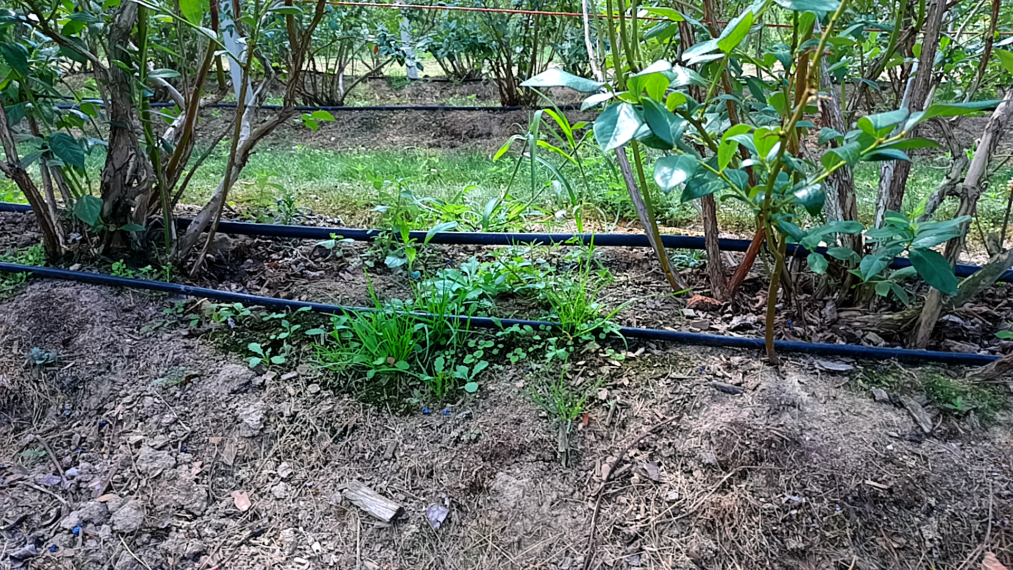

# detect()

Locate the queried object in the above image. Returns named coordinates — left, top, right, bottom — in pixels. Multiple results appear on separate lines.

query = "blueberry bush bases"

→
left=277, top=80, right=355, bottom=115
left=623, top=200, right=1005, bottom=385
left=486, top=77, right=552, bottom=118
left=2, top=165, right=240, bottom=305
